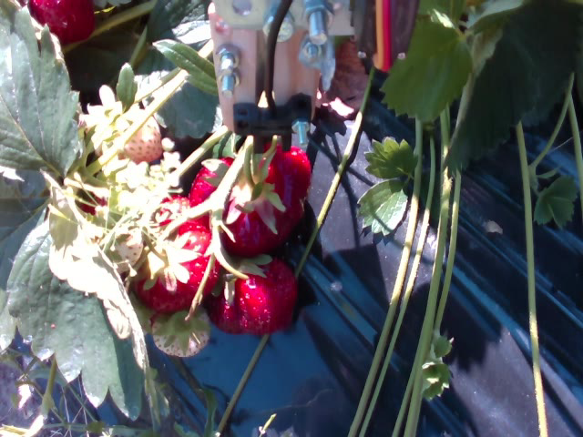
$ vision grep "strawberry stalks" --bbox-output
[213,246,250,283]
[241,140,265,213]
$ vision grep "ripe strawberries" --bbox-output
[25,0,98,36]
[187,157,305,246]
[132,207,213,309]
[258,146,314,197]
[217,255,297,335]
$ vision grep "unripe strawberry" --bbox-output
[103,103,160,160]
